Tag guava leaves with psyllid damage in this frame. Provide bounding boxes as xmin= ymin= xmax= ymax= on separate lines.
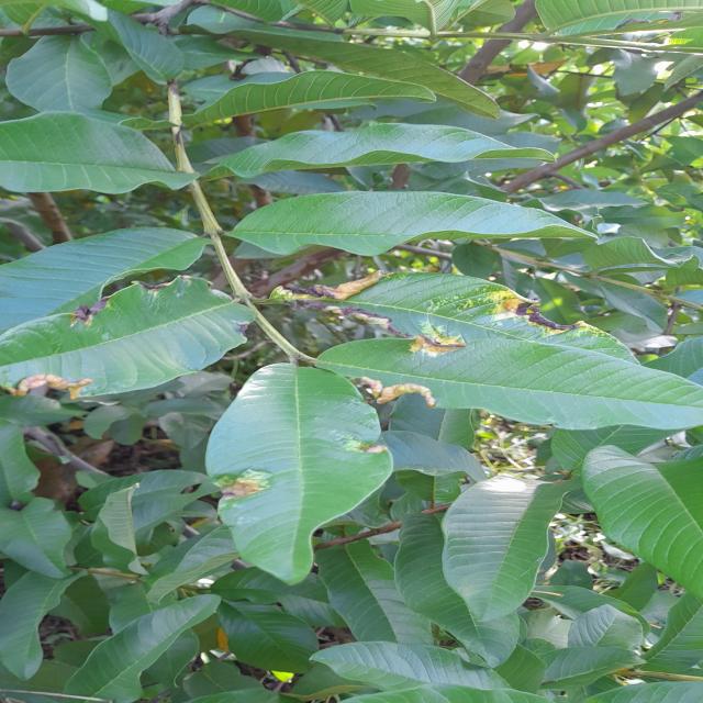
xmin=284 ymin=331 xmax=702 ymax=429
xmin=194 ymin=359 xmax=405 ymax=579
